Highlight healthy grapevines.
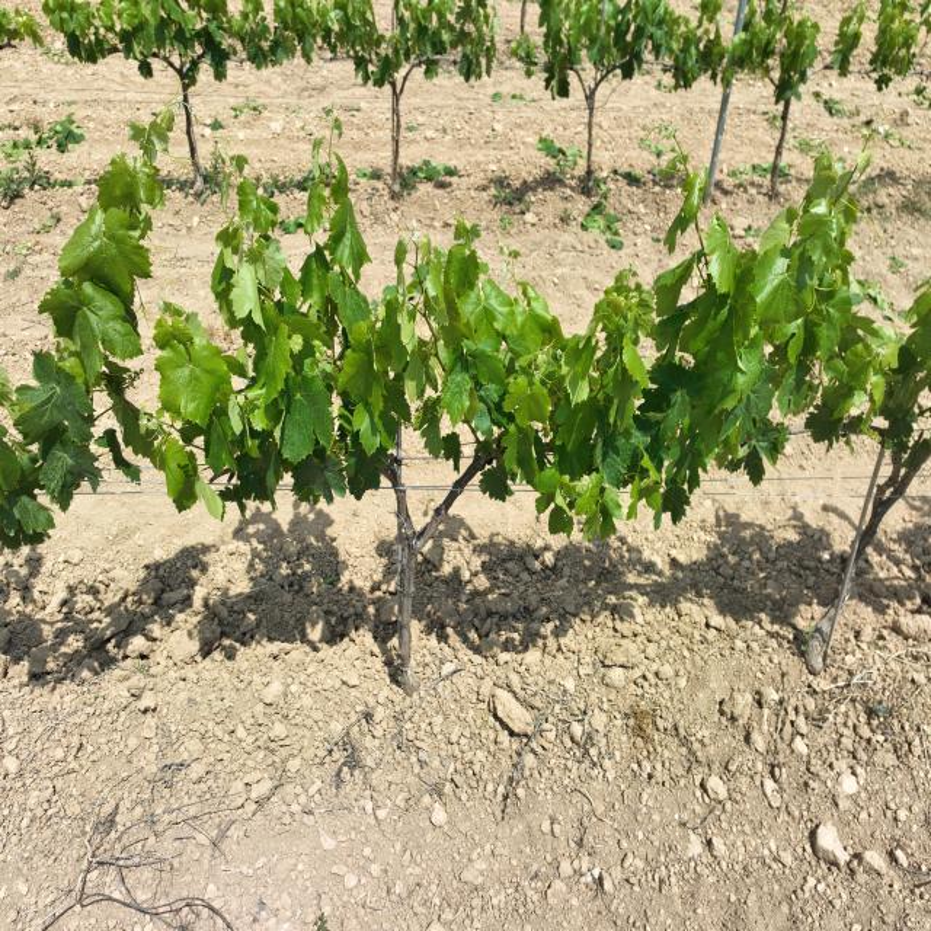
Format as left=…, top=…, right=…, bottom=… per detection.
left=147, top=159, right=679, bottom=725
left=681, top=165, right=931, bottom=686
left=0, top=111, right=153, bottom=630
